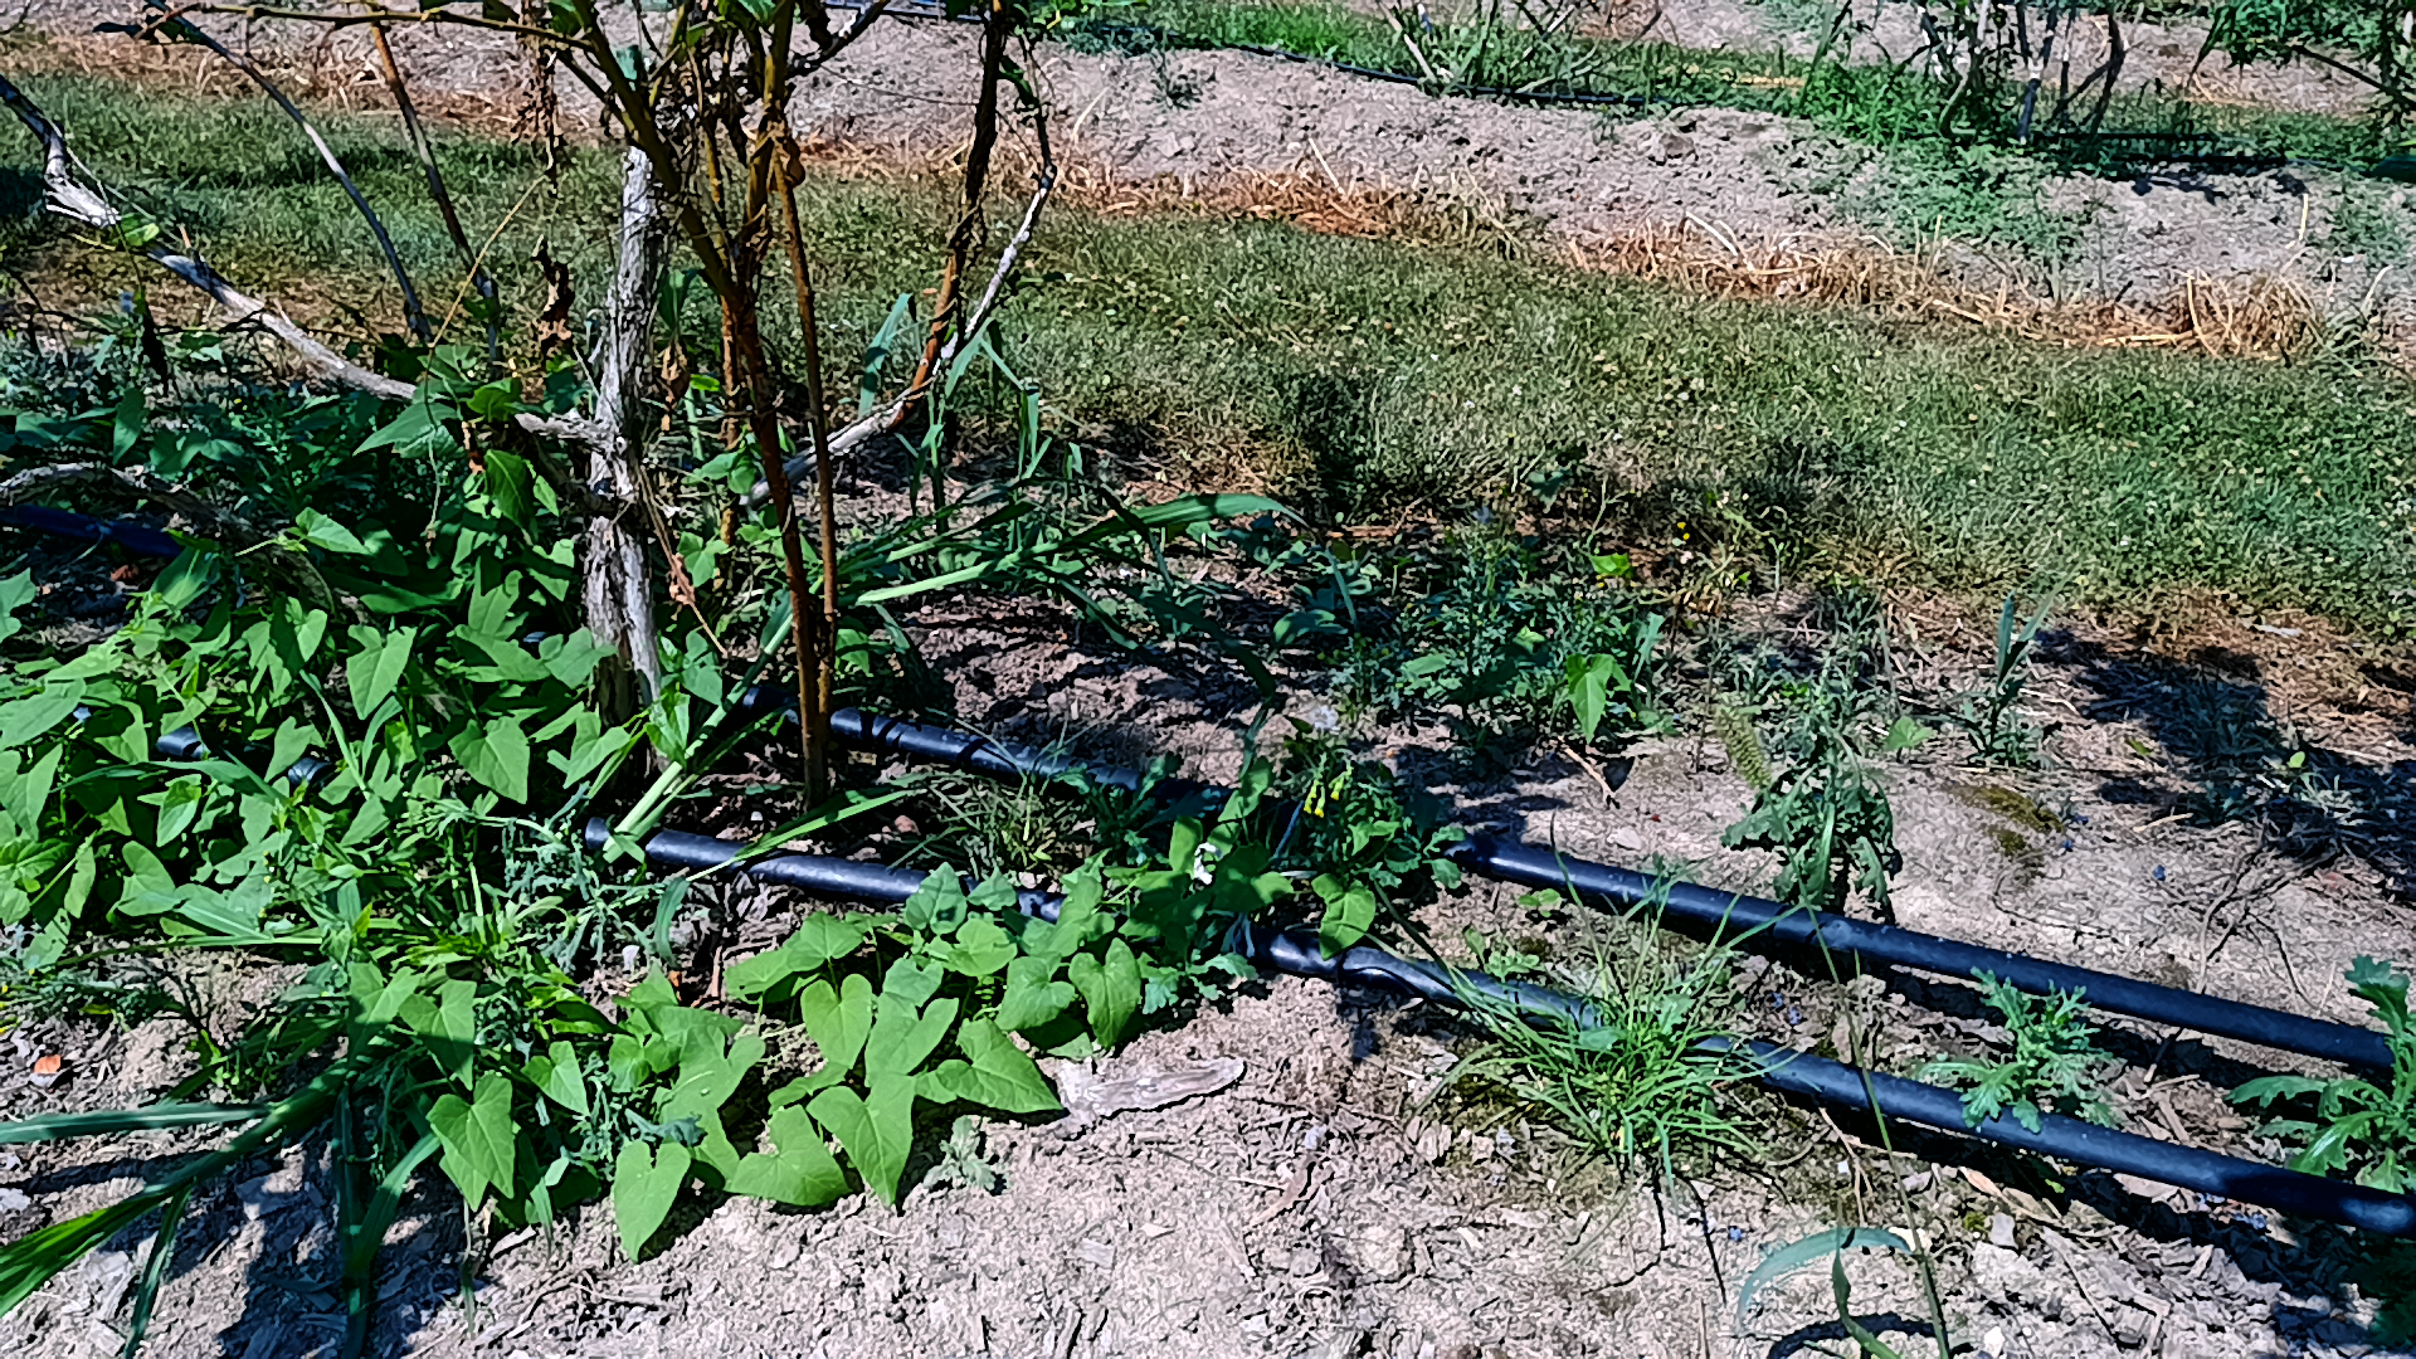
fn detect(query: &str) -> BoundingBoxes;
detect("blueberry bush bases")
[344,349,912,902]
[1376,21,1596,138]
[1898,42,2127,192]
